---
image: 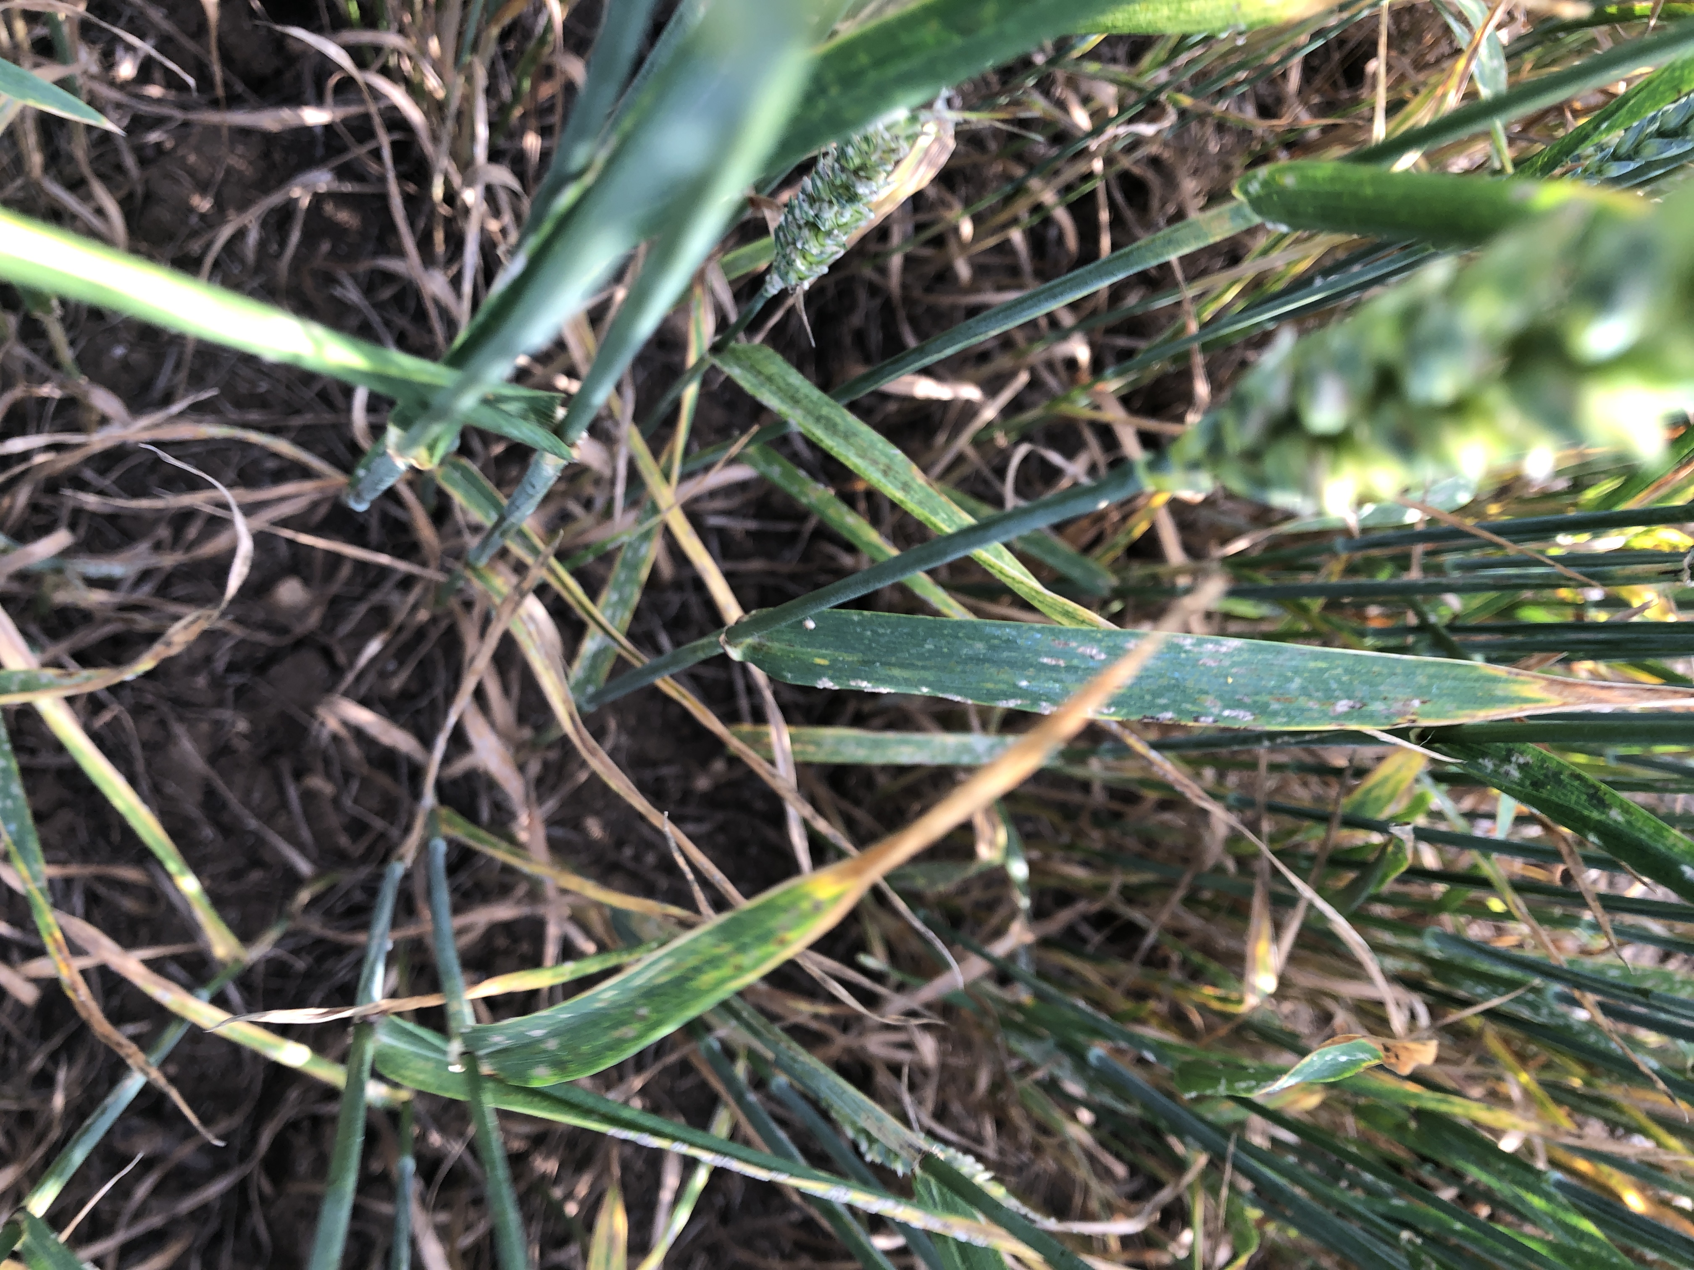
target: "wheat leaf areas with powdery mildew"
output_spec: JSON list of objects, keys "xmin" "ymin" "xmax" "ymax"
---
[
  {"xmin": 790, "ymin": 606, "xmax": 1516, "ymax": 756},
  {"xmin": 442, "ymin": 900, "xmax": 829, "ymax": 1125}
]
